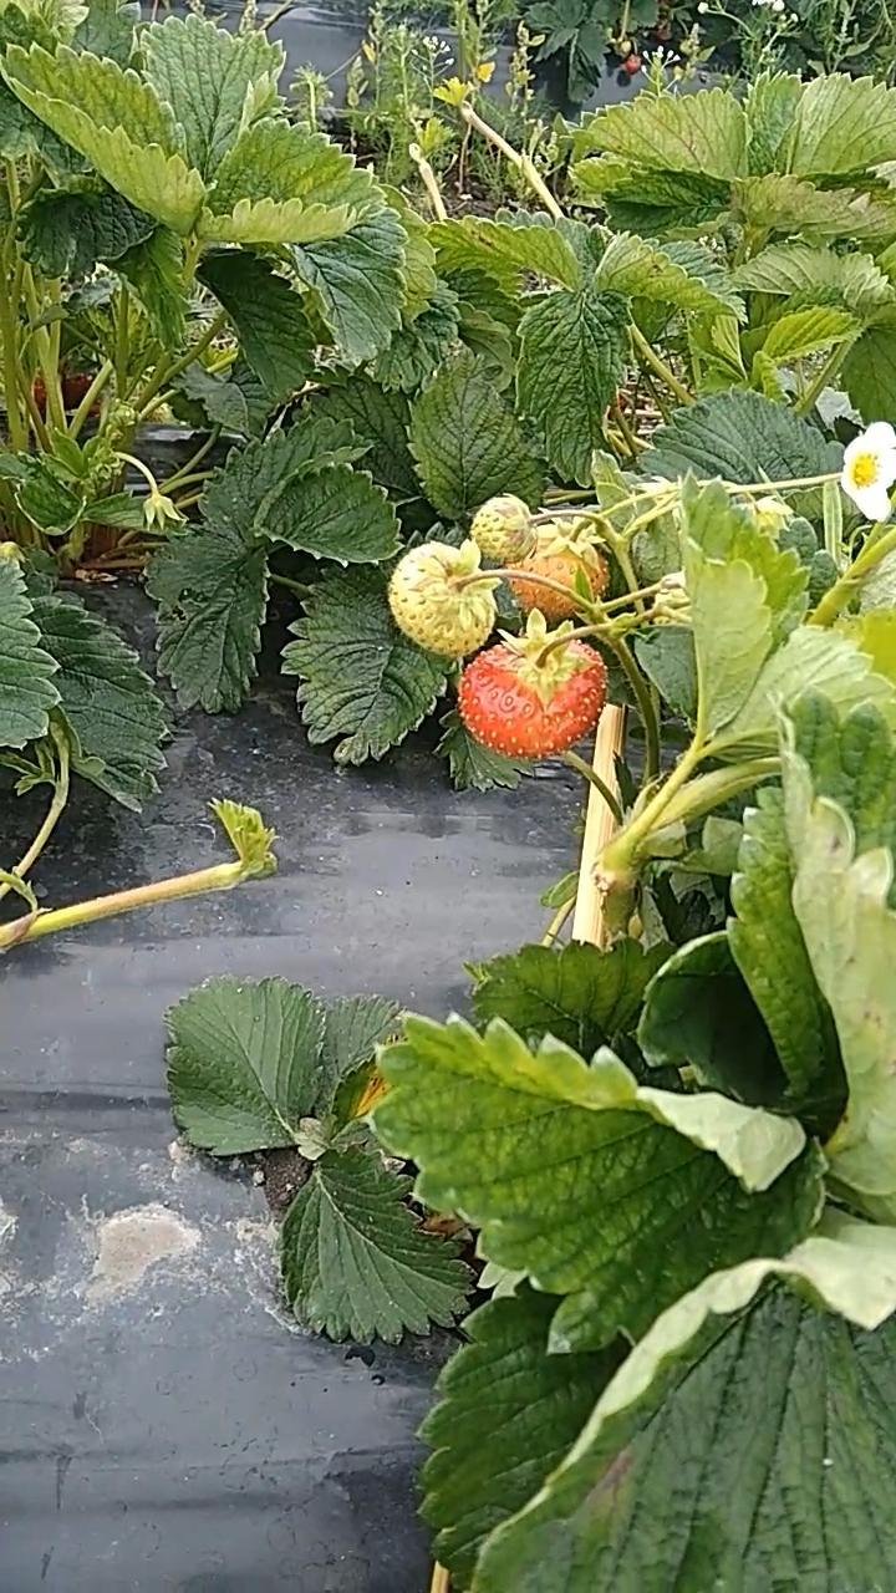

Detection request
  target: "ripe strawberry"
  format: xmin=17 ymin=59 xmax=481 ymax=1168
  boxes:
xmin=454 ymin=637 xmax=613 ymax=764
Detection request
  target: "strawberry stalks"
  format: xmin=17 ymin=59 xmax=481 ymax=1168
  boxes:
xmin=518 ymin=599 xmax=642 ymax=693
xmin=454 ymin=563 xmax=539 ymax=603
xmin=512 ymin=500 xmax=599 ymax=535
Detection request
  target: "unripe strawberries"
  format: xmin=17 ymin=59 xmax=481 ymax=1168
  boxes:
xmin=472 ymin=489 xmax=535 ymax=564
xmin=386 ymin=538 xmax=490 ymax=661
xmin=502 ymin=518 xmax=609 ymax=622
